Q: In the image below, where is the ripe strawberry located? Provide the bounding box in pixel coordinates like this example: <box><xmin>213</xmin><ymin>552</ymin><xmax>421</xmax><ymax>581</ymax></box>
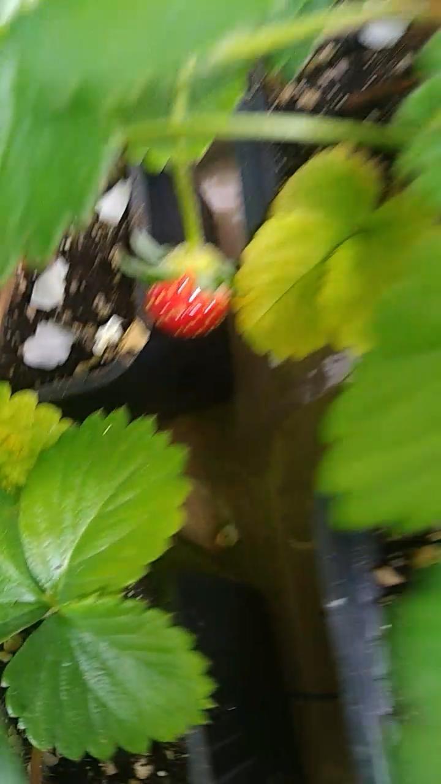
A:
<box><xmin>128</xmin><ymin>265</ymin><xmax>238</xmax><ymax>339</ymax></box>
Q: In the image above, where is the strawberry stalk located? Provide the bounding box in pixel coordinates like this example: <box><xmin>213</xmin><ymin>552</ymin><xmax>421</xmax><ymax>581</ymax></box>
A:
<box><xmin>179</xmin><ymin>168</ymin><xmax>208</xmax><ymax>289</ymax></box>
